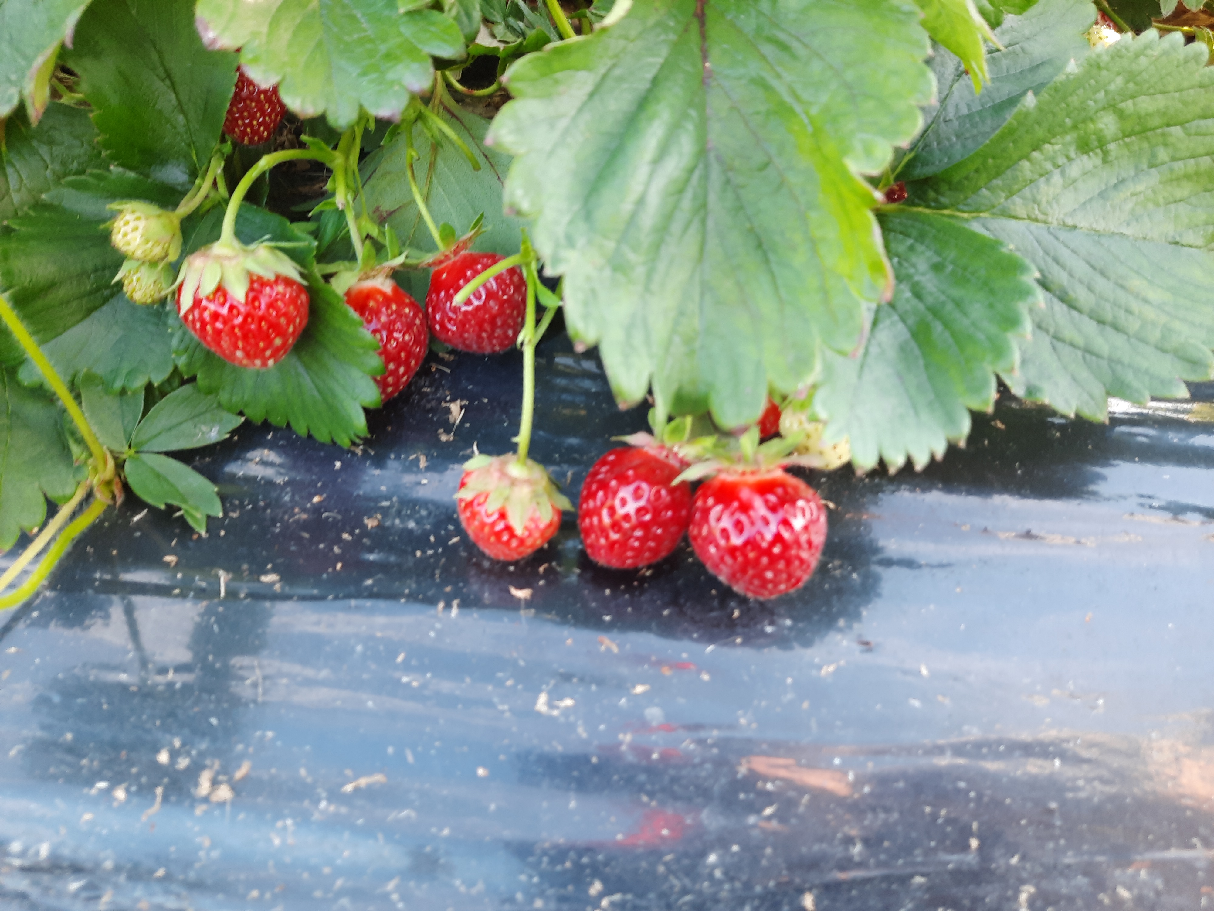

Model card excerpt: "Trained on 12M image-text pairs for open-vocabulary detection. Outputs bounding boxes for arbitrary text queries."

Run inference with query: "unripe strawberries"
[109,198,189,264]
[105,248,177,301]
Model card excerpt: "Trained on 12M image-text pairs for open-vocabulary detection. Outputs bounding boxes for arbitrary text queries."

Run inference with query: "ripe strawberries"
[175,250,307,363]
[688,472,825,598]
[586,450,701,563]
[191,60,305,149]
[438,250,514,354]
[317,275,407,386]
[457,461,556,567]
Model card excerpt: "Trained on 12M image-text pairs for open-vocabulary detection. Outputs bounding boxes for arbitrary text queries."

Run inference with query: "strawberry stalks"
[736,399,776,513]
[333,177,380,312]
[403,169,458,280]
[492,277,537,508]
[217,157,271,281]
